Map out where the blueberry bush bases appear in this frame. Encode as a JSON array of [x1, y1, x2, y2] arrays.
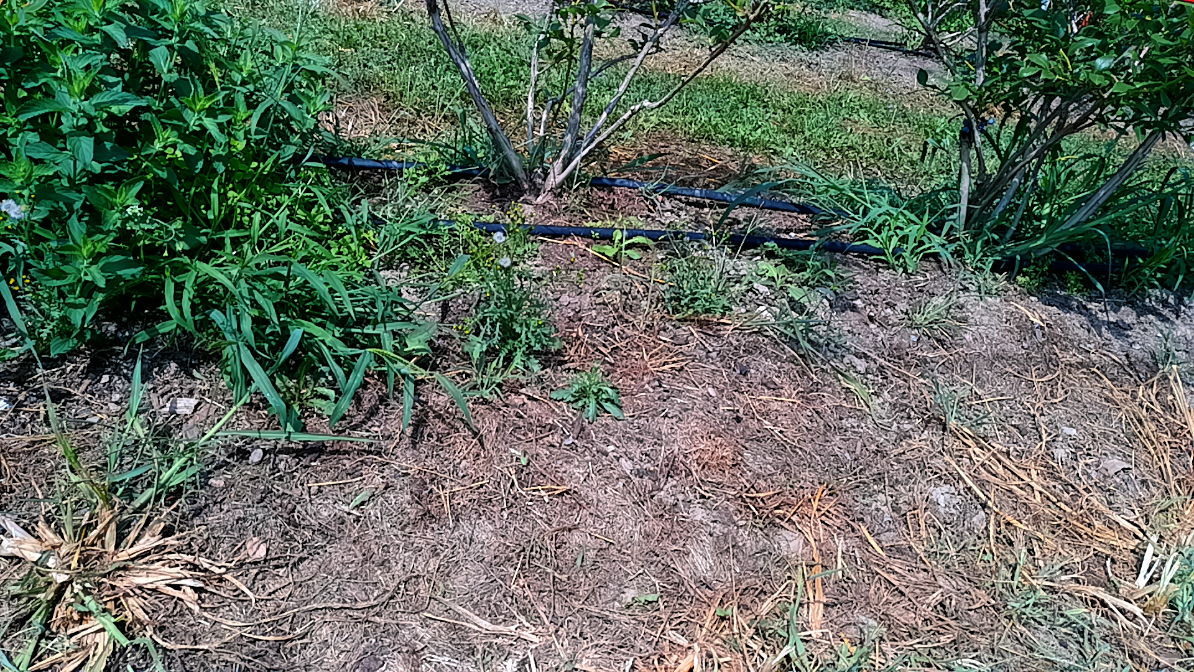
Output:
[[901, 17, 960, 64], [445, 85, 652, 245], [918, 114, 1141, 296]]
